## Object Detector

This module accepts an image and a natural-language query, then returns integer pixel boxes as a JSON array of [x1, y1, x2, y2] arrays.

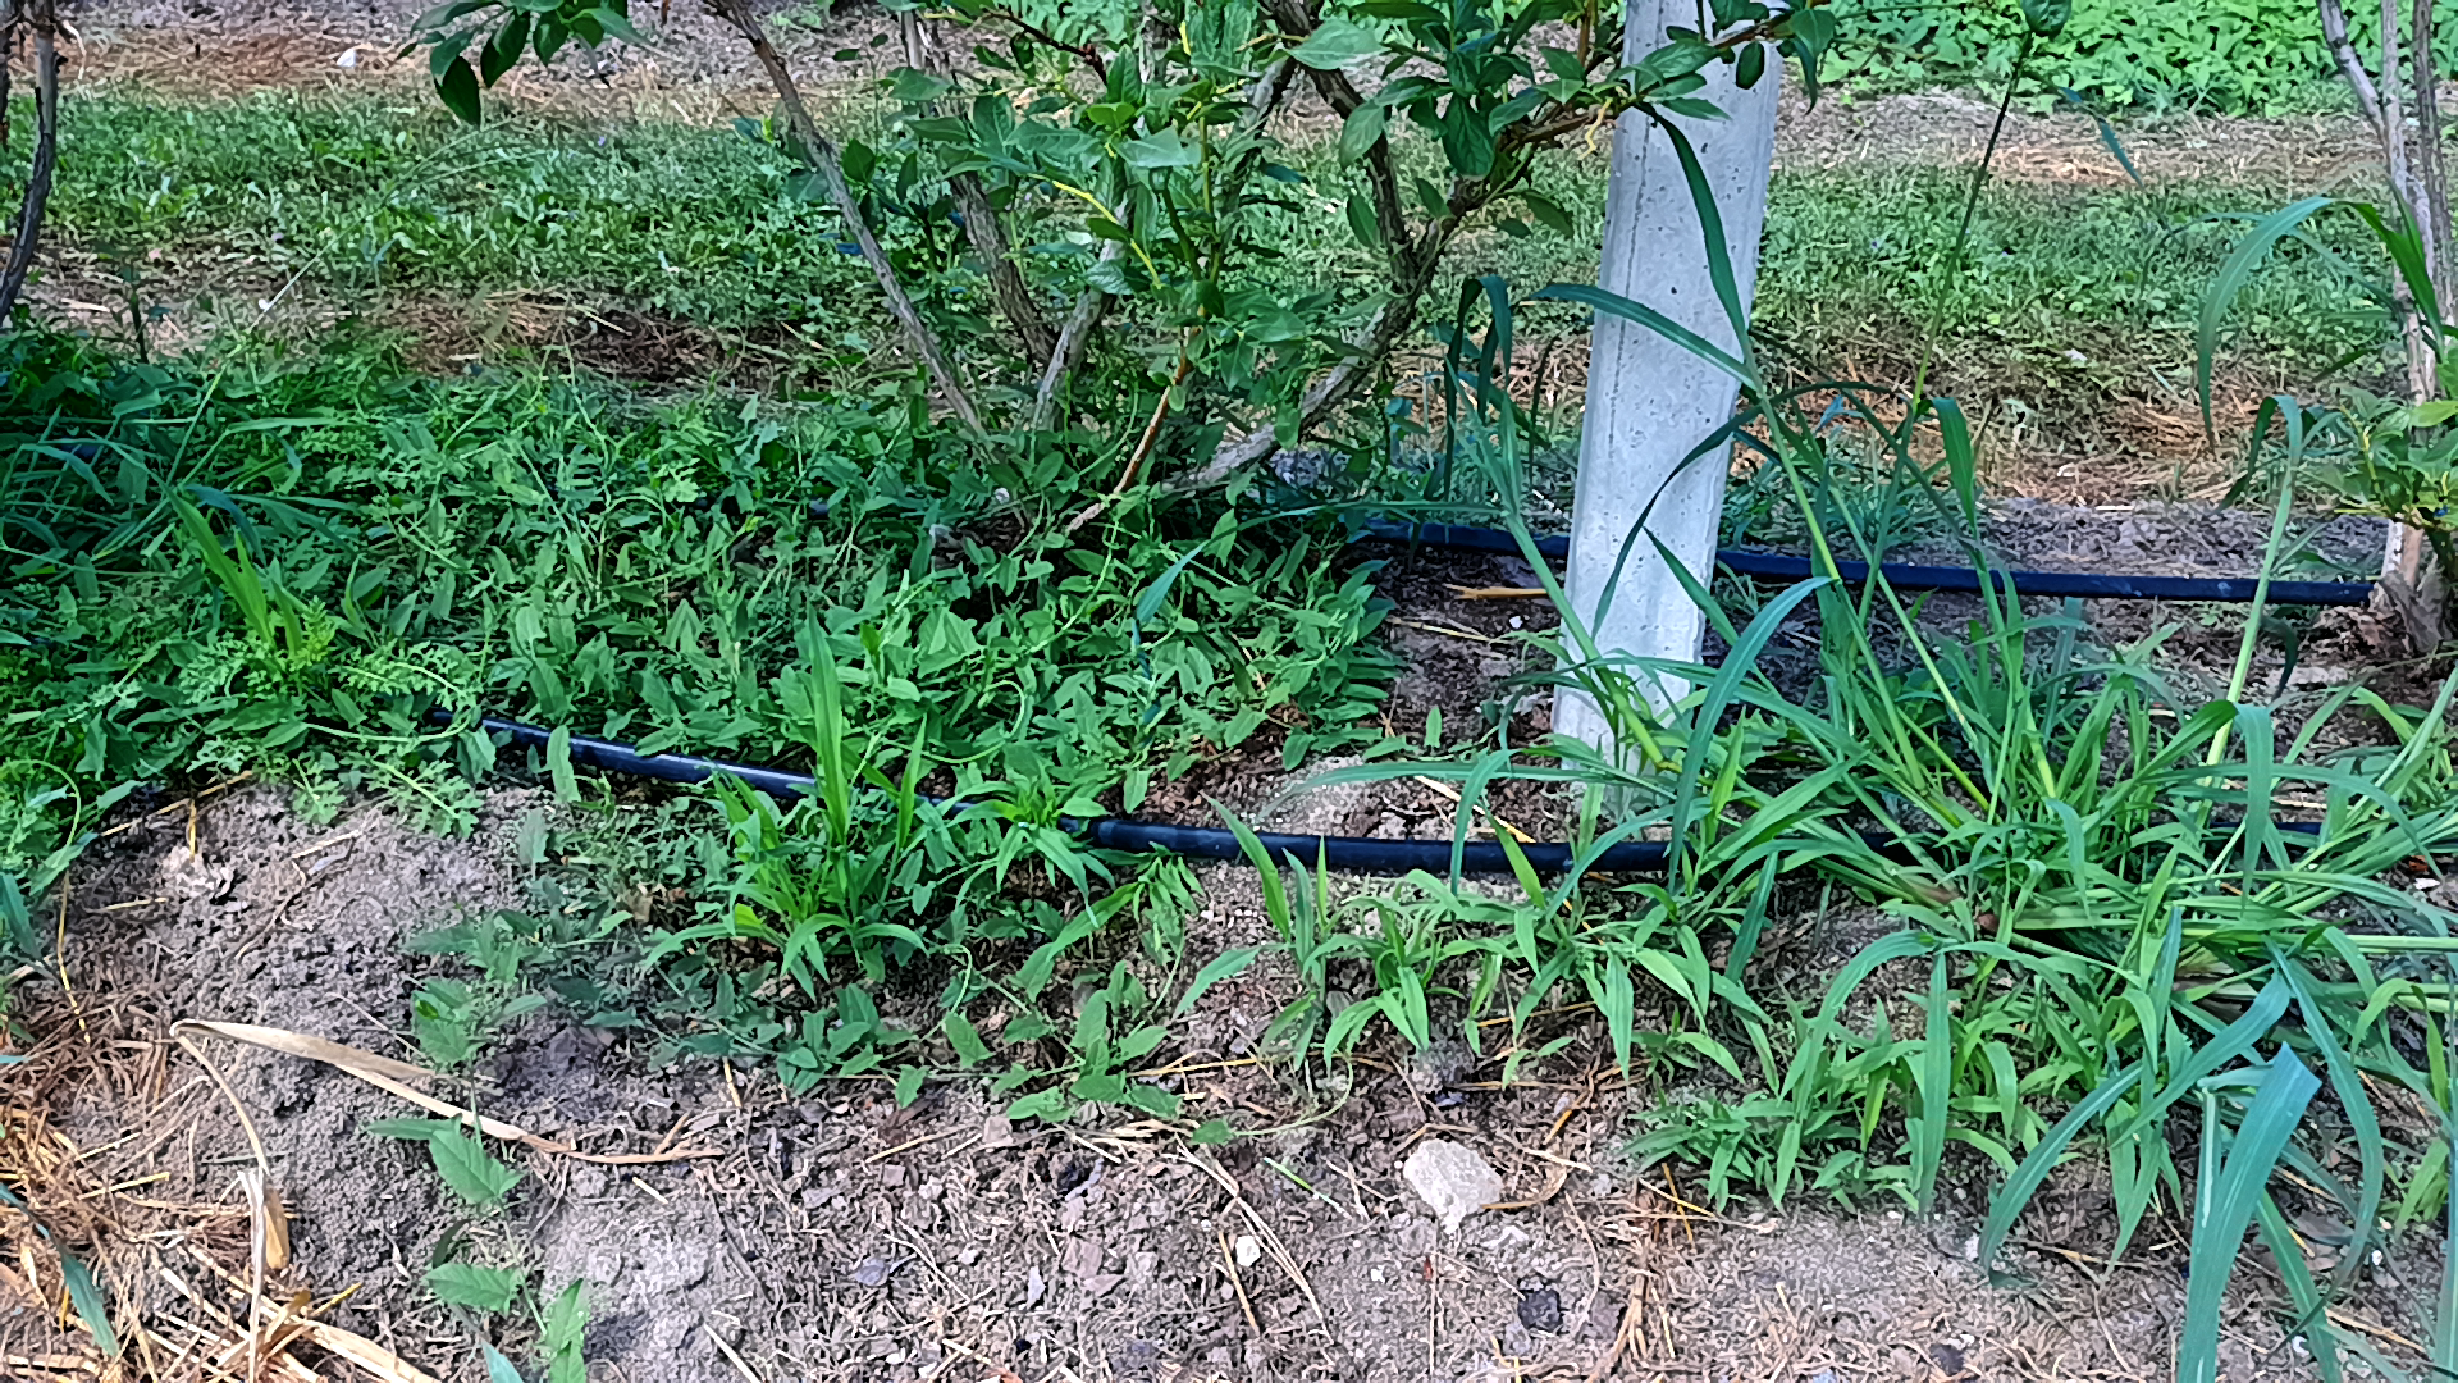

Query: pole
[[1543, 0, 1818, 797]]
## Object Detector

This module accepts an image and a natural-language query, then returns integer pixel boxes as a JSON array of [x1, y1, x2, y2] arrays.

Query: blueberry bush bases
[[2288, 357, 2458, 813], [810, 170, 1362, 685]]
